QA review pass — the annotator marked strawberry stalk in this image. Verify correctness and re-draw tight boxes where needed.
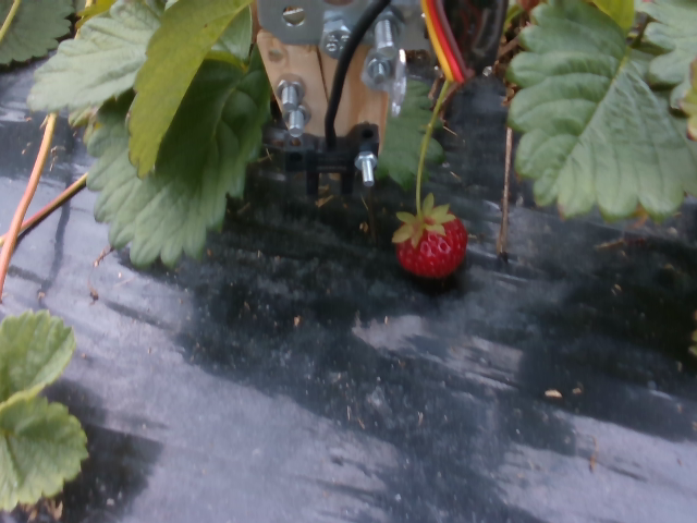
[413,95,444,245]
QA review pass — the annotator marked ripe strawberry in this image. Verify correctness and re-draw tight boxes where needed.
[396,209,472,278]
